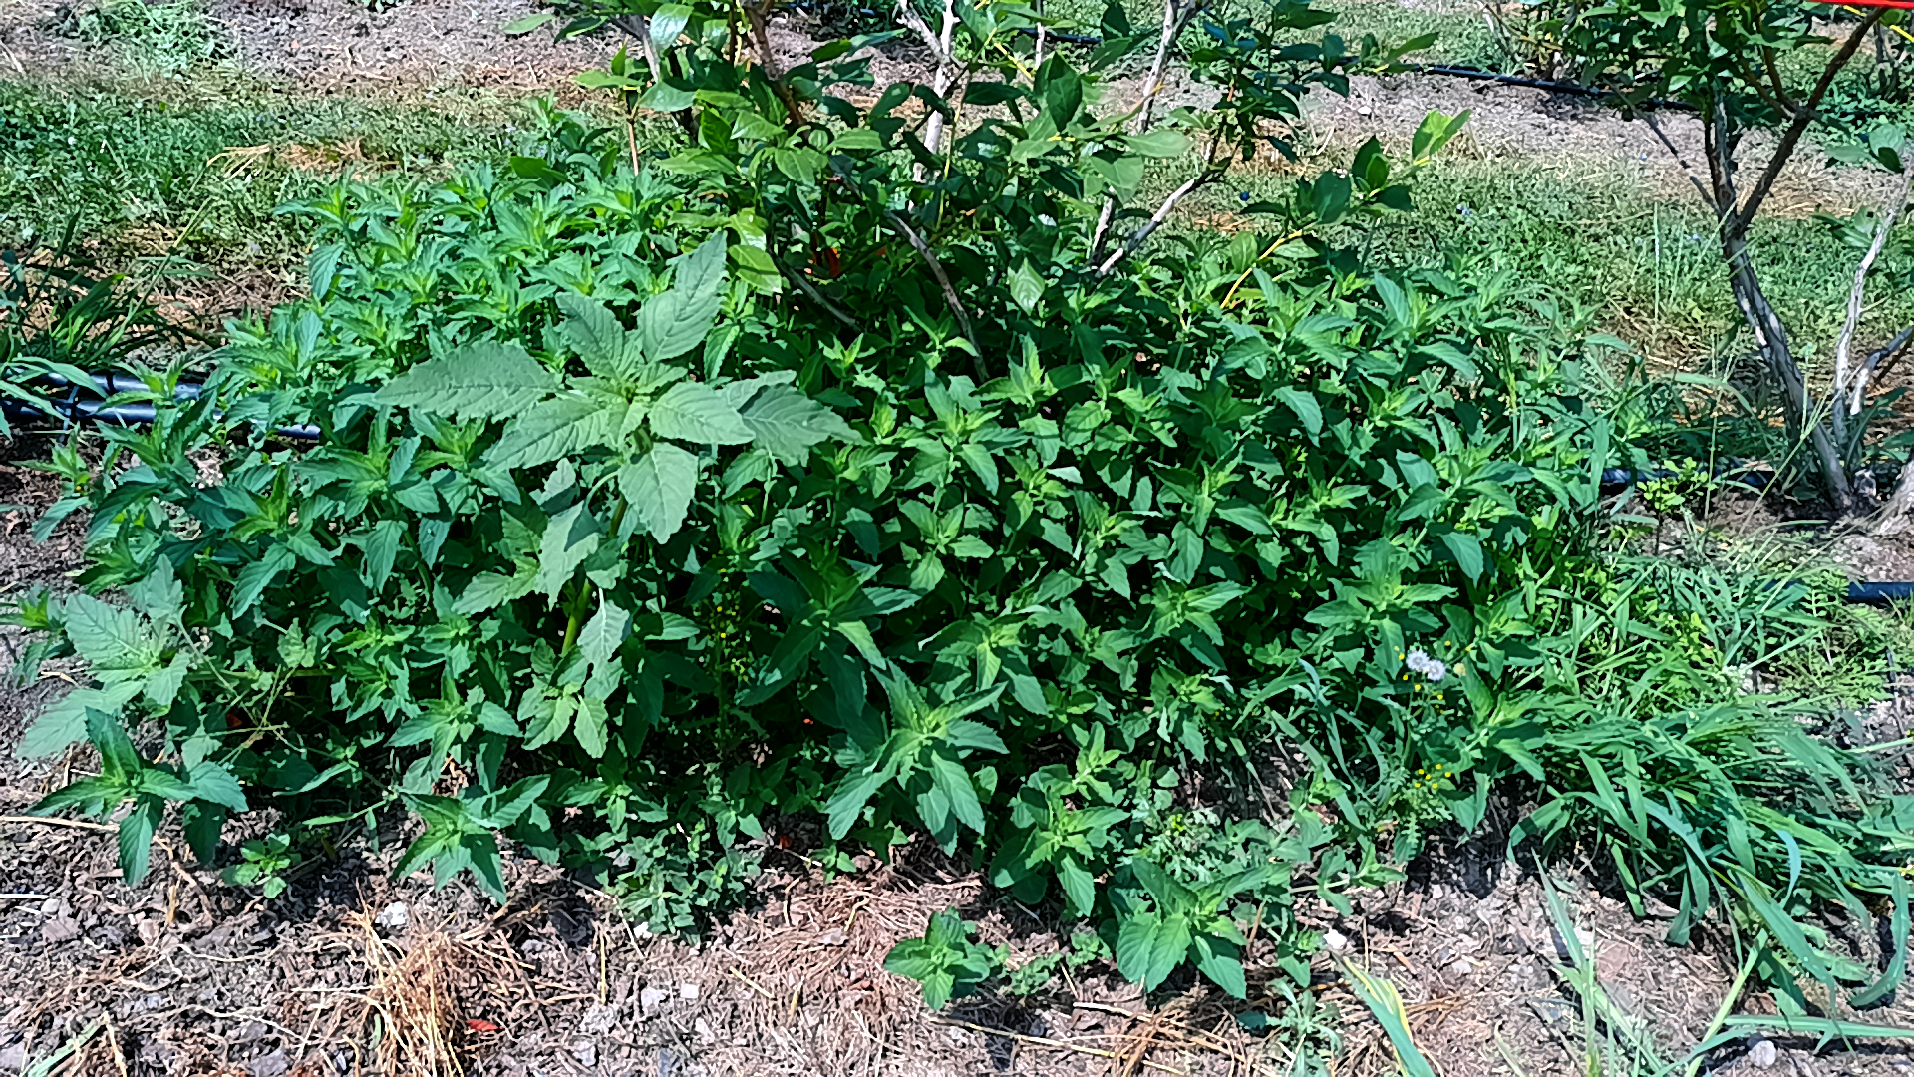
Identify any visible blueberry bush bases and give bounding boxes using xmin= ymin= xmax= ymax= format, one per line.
xmin=1490 ymin=30 xmax=1606 ymax=105
xmin=1672 ymin=267 xmax=1914 ymax=556
xmin=728 ymin=97 xmax=1212 ymax=518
